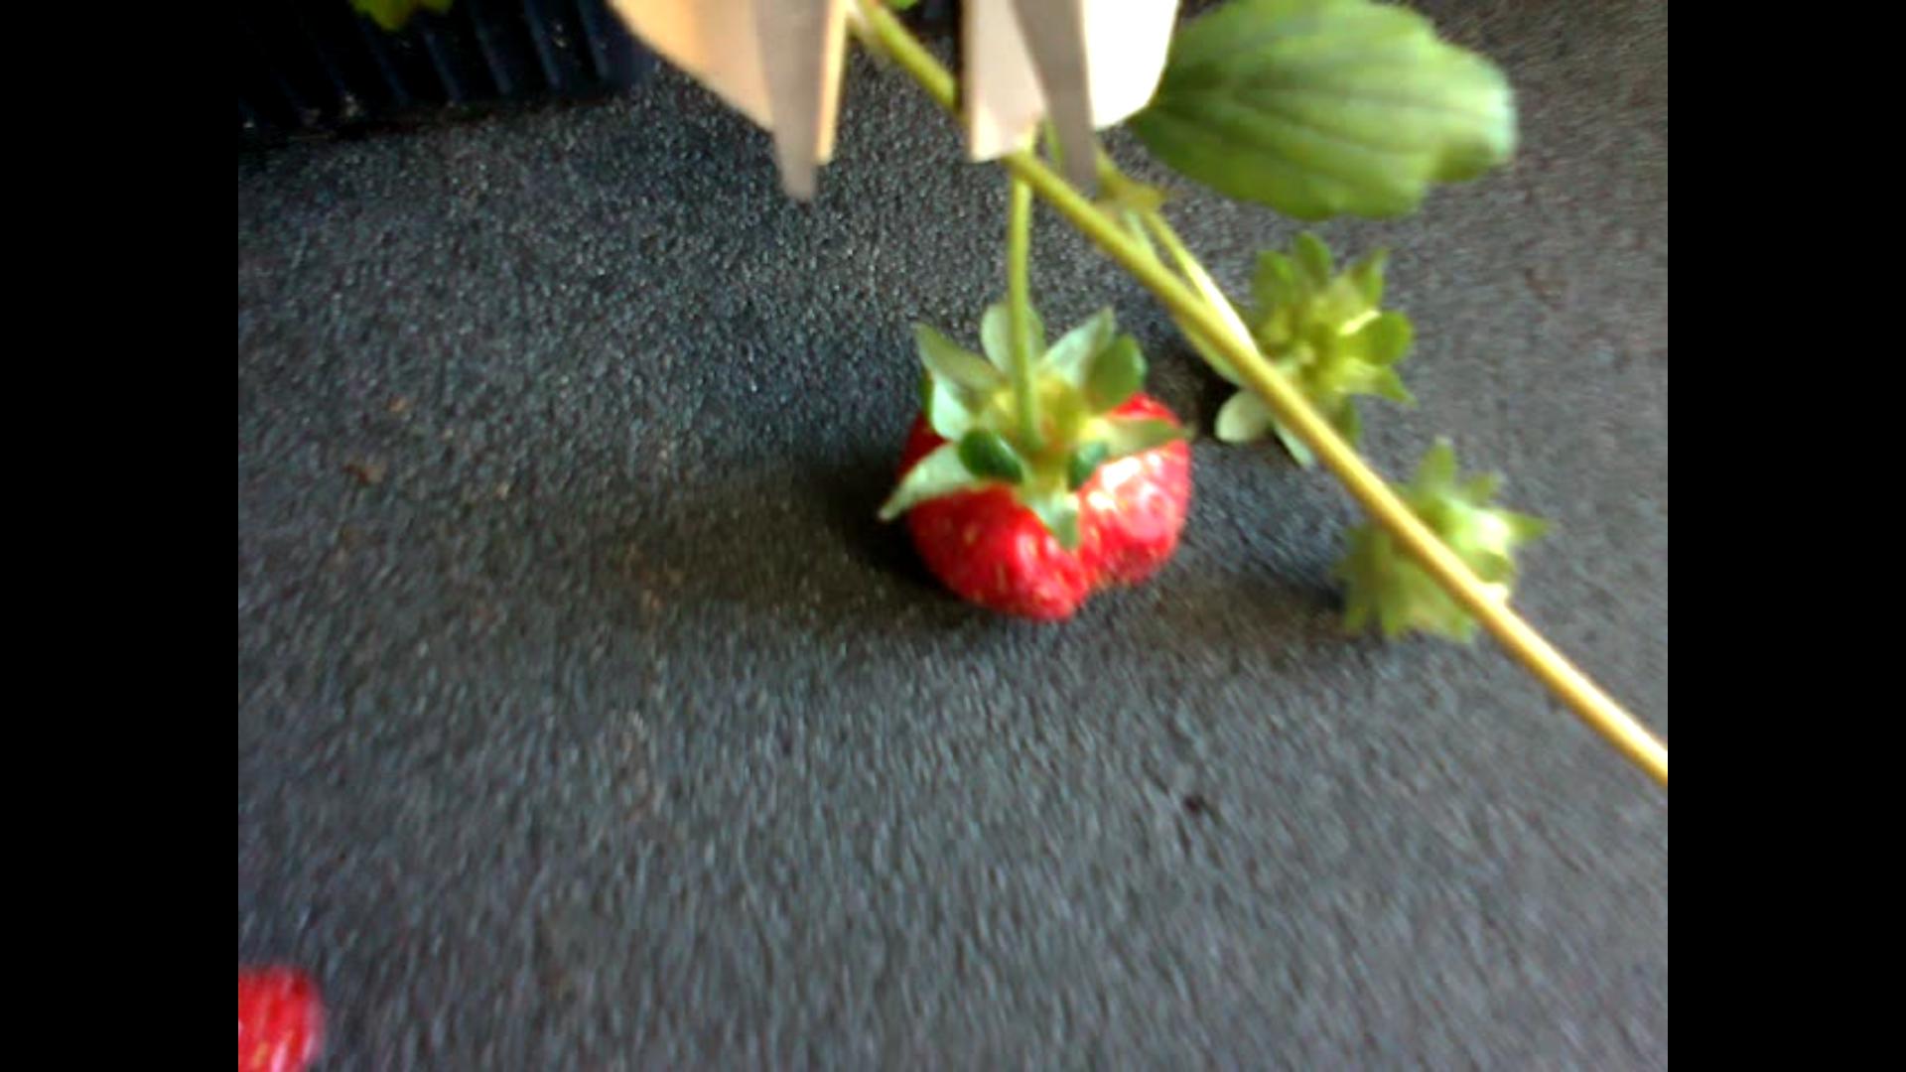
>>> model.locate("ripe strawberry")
[921,363,1221,623]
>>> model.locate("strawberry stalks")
[970,165,1114,506]
[1212,311,1330,389]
